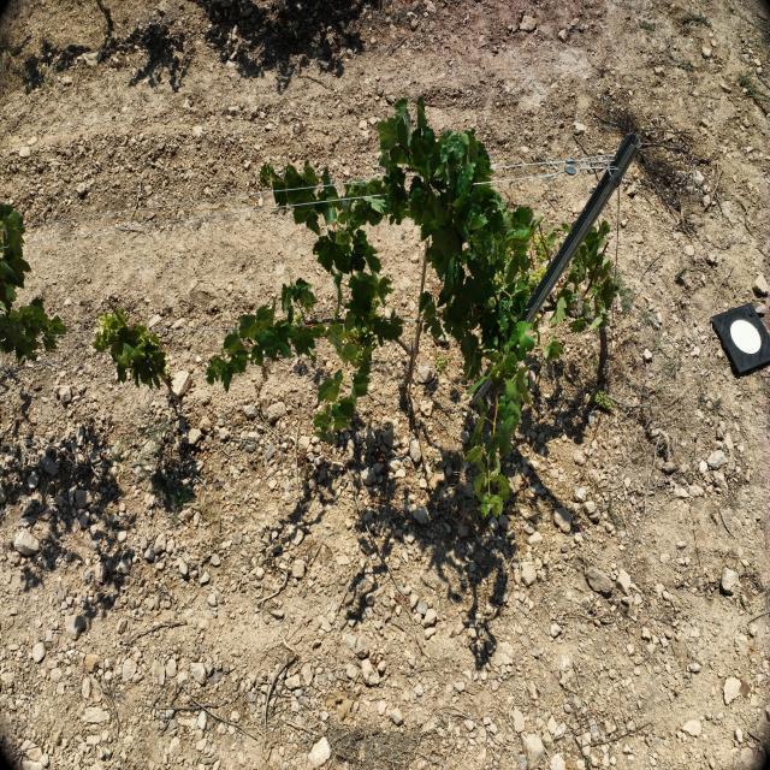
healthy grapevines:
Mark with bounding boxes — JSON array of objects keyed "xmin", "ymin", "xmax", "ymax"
[
  {"xmin": 78, "ymin": 266, "xmax": 189, "ymax": 433},
  {"xmin": 201, "ymin": 88, "xmax": 646, "ymax": 537}
]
